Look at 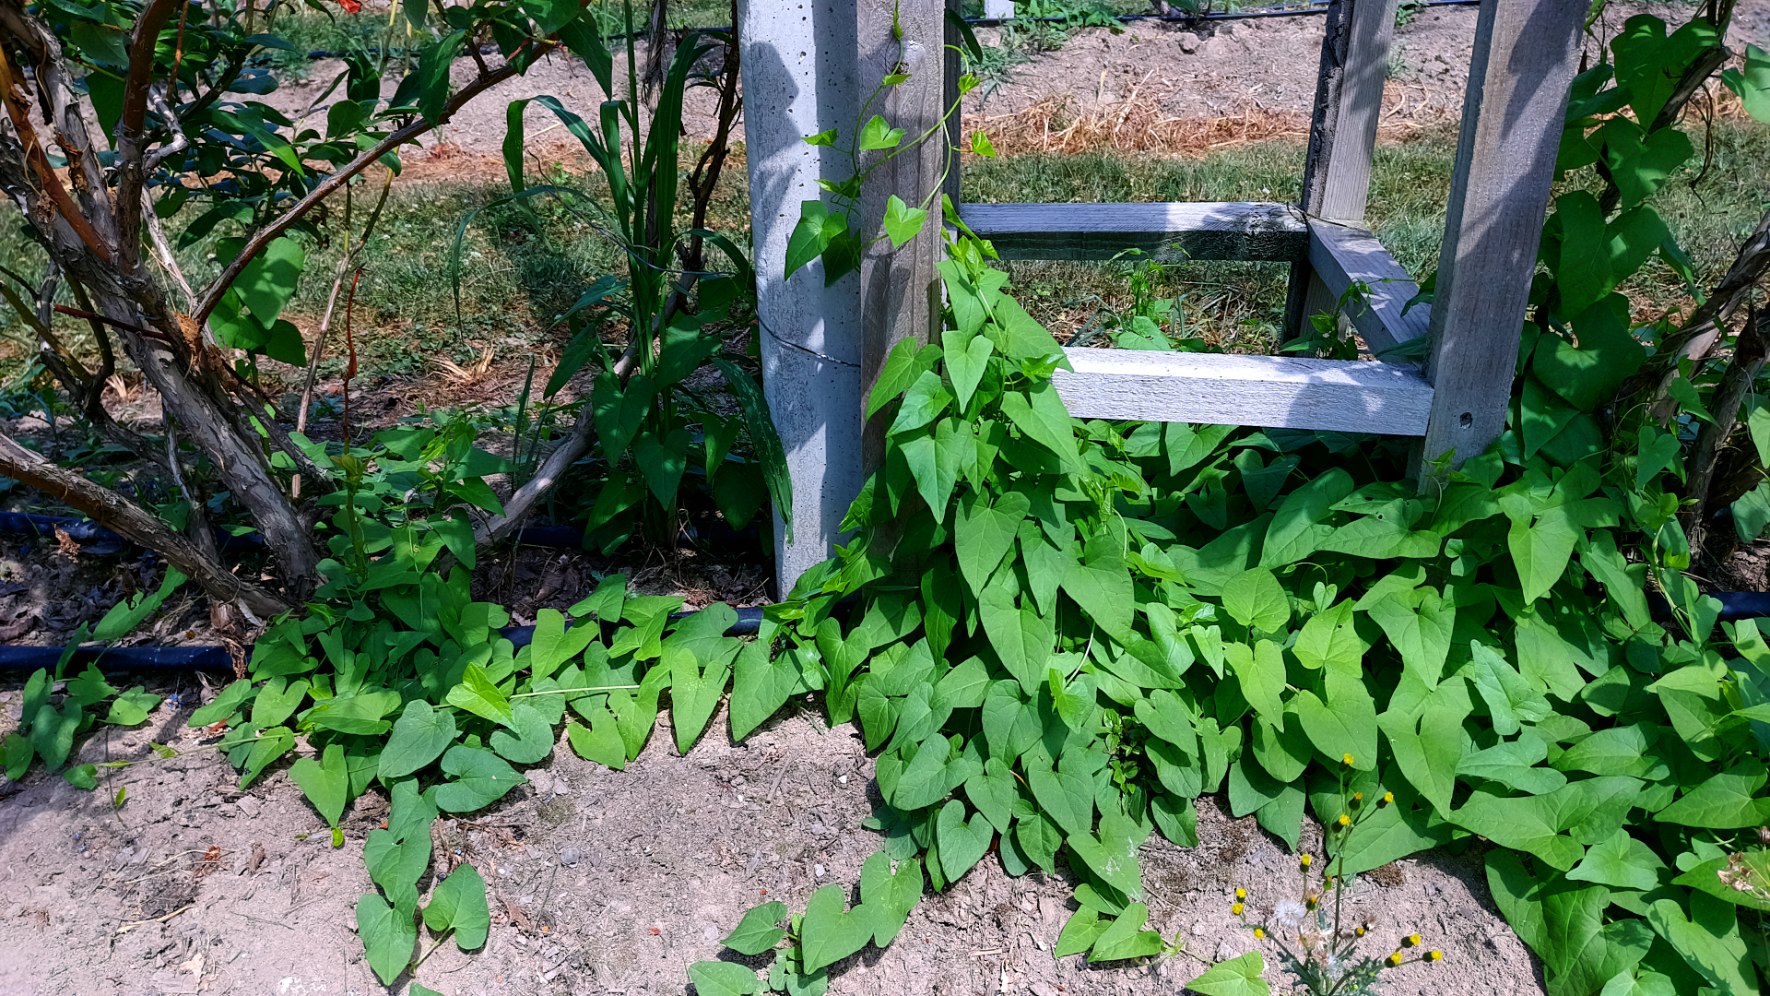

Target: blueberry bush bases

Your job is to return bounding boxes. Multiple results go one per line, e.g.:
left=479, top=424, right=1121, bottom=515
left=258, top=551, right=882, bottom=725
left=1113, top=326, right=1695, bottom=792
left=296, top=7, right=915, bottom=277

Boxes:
left=0, top=278, right=503, bottom=801
left=1547, top=339, right=1768, bottom=749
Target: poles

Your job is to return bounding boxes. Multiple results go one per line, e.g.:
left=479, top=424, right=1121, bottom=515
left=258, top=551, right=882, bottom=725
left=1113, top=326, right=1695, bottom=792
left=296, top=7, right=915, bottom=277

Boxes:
left=1381, top=1, right=1594, bottom=499
left=860, top=0, right=949, bottom=588
left=740, top=0, right=857, bottom=584
left=1281, top=0, right=1395, bottom=327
